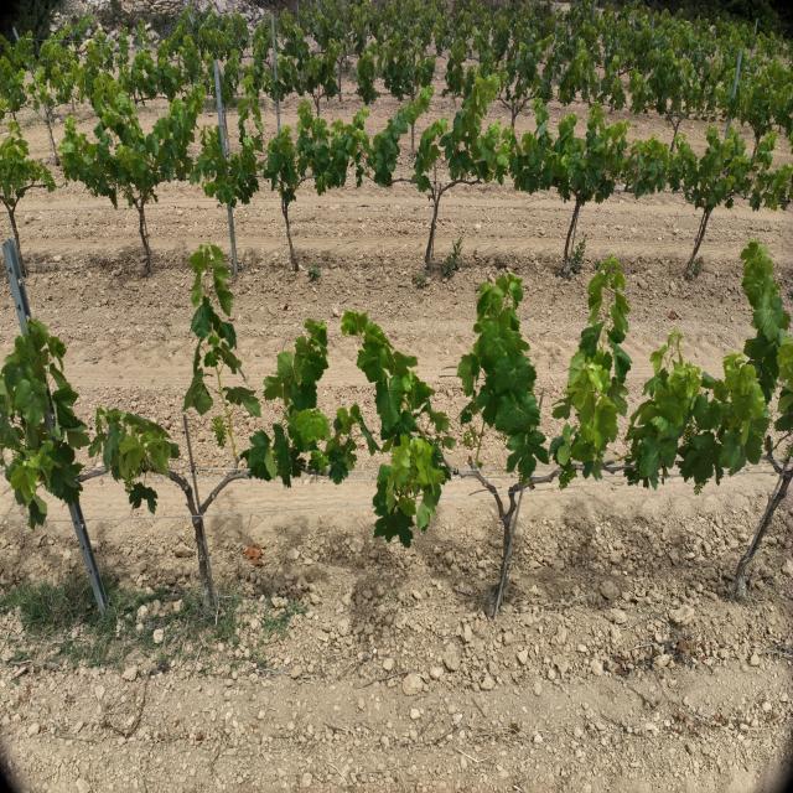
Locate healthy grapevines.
[0,245,364,640]
[367,254,696,631]
[688,234,793,612]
